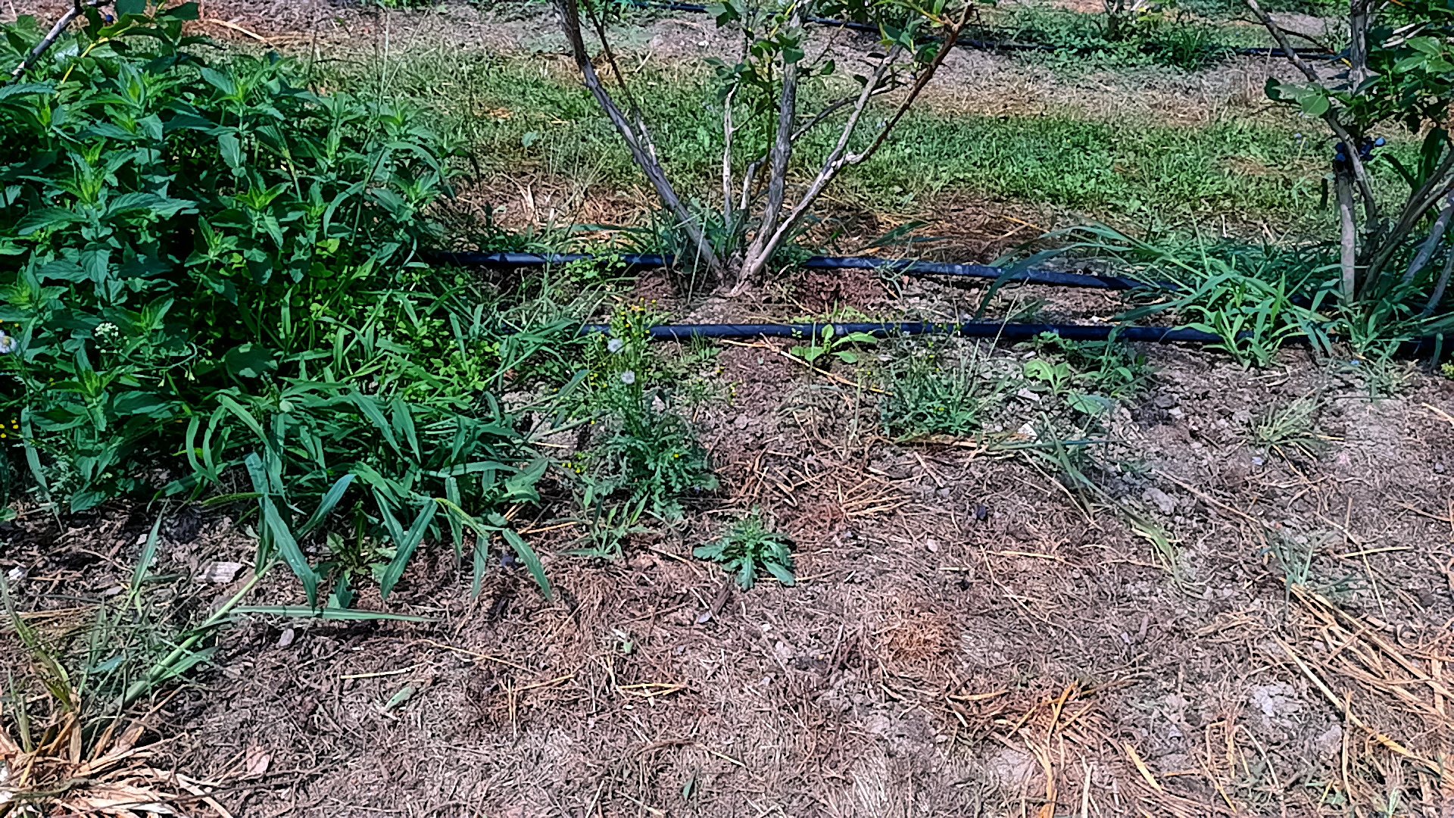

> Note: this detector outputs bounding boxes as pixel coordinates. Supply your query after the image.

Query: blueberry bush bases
[1306,167,1452,387]
[1073,0,1171,68]
[585,123,878,344]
